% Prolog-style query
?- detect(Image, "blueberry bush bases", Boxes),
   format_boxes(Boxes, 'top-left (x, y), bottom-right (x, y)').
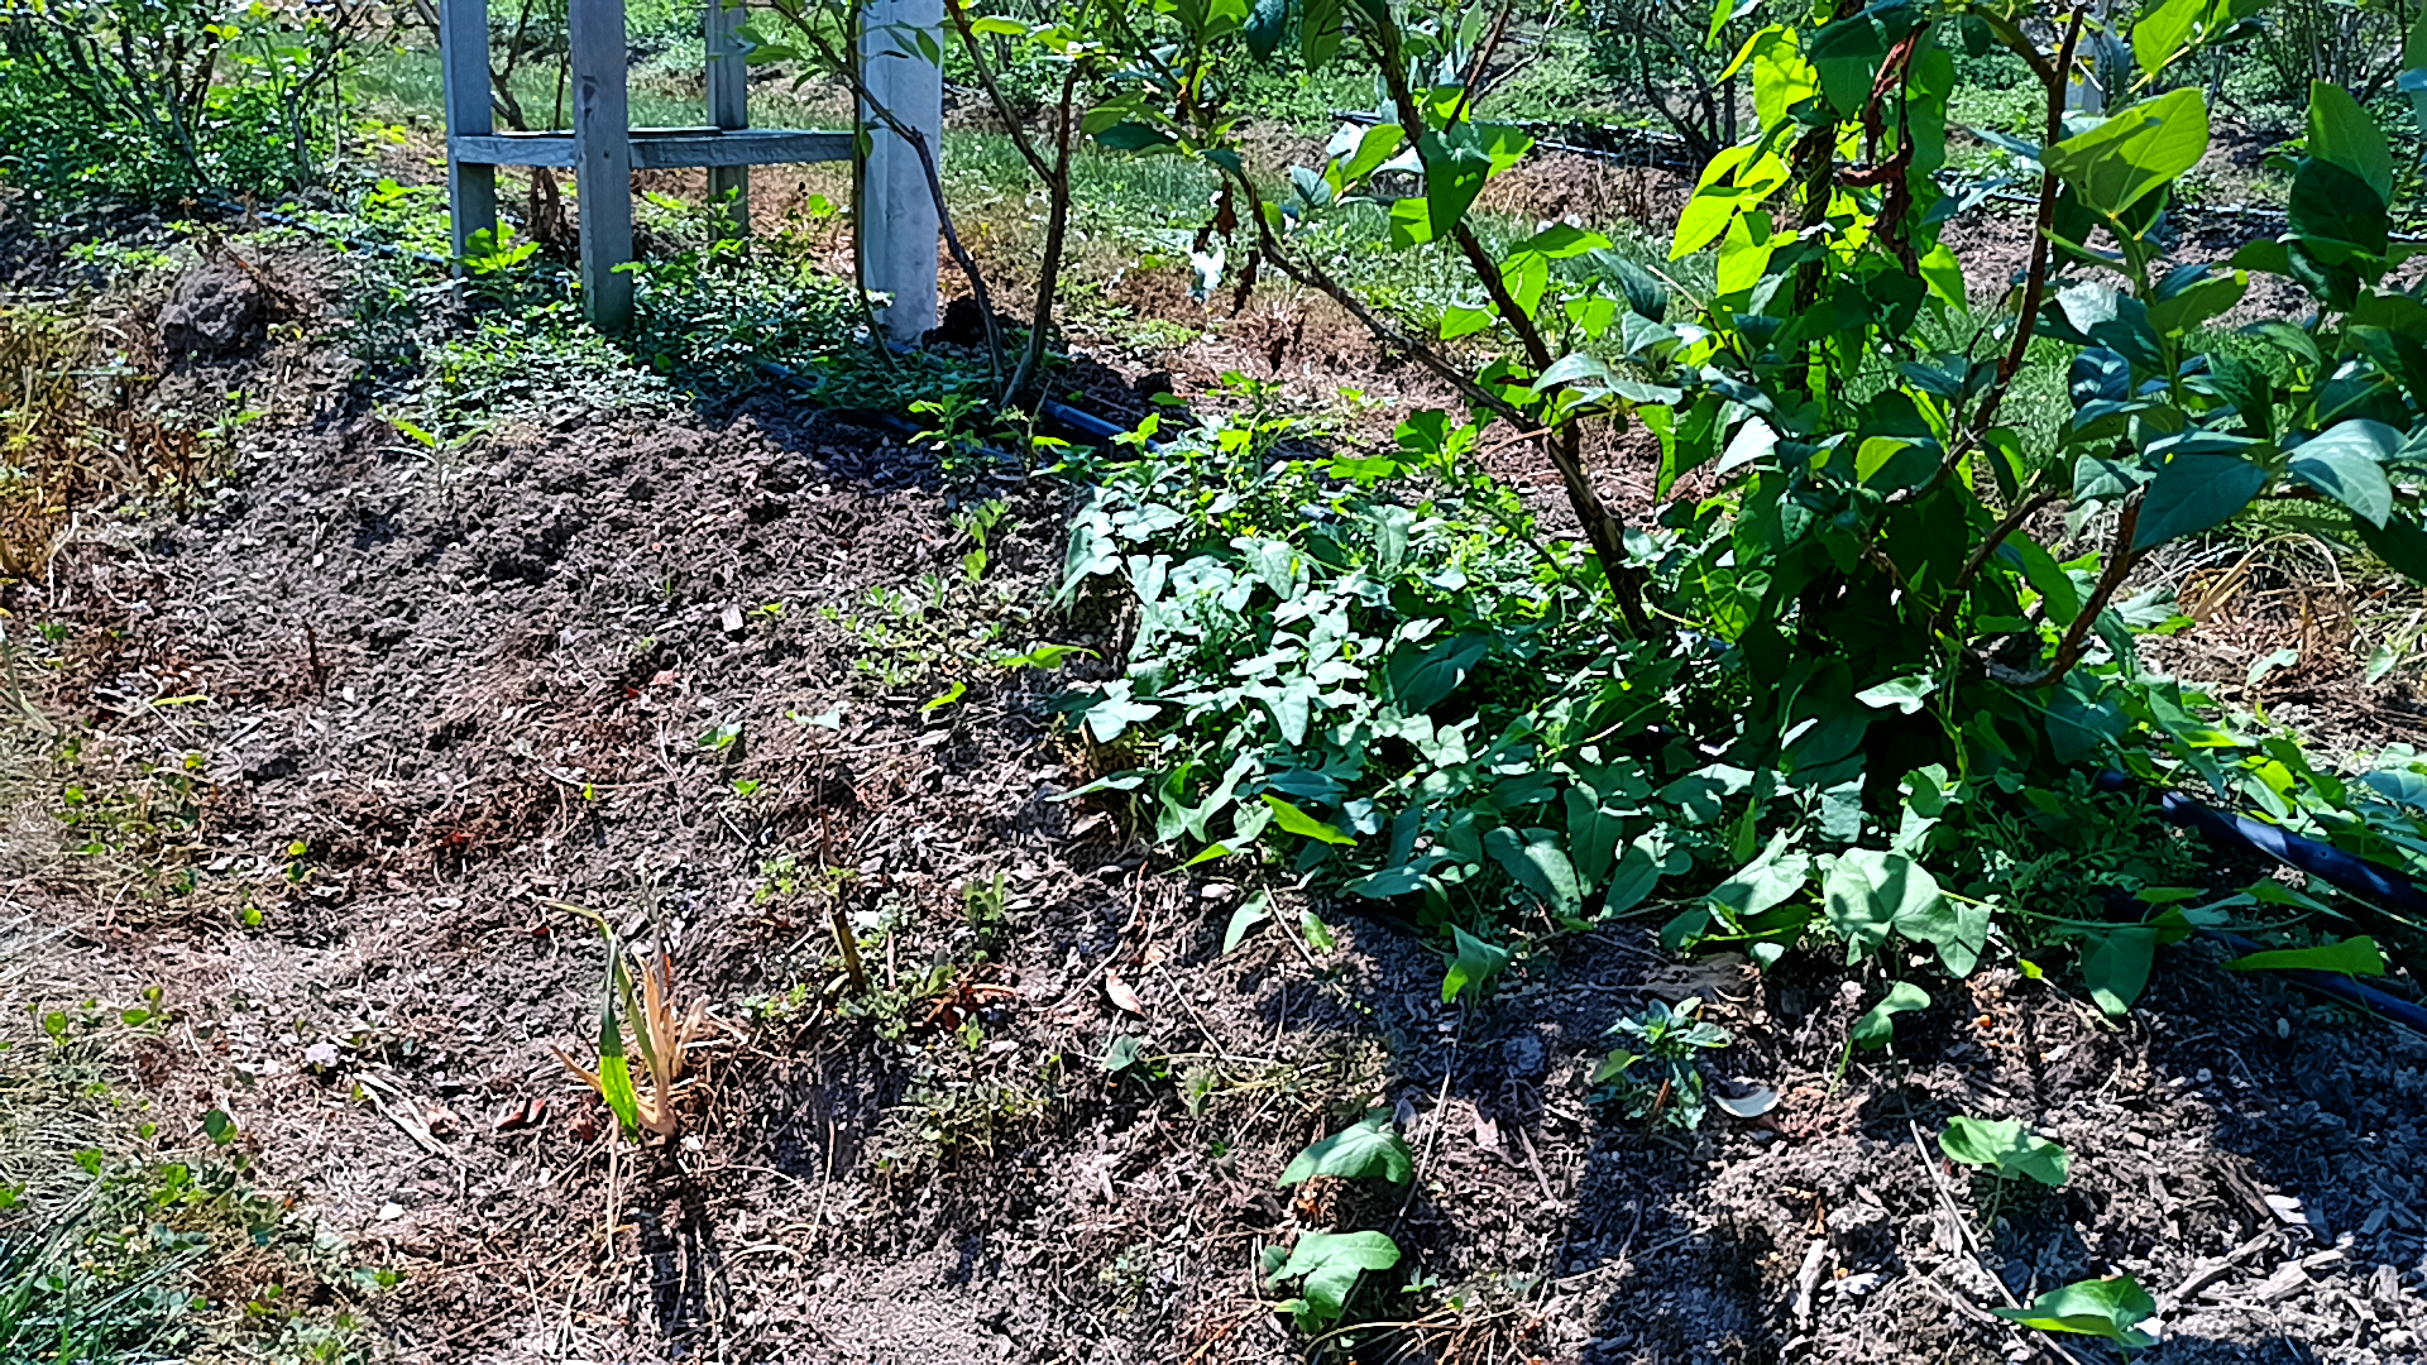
top-left (1434, 369), bottom-right (2352, 903)
top-left (67, 49), bottom-right (281, 249)
top-left (951, 44), bottom-right (1086, 446)
top-left (1610, 32), bottom-right (1753, 203)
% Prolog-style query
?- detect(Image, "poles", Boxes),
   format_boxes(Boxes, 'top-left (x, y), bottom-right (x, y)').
top-left (704, 5), bottom-right (759, 303)
top-left (570, 8), bottom-right (648, 360)
top-left (428, 2), bottom-right (515, 299)
top-left (859, 3), bottom-right (942, 375)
